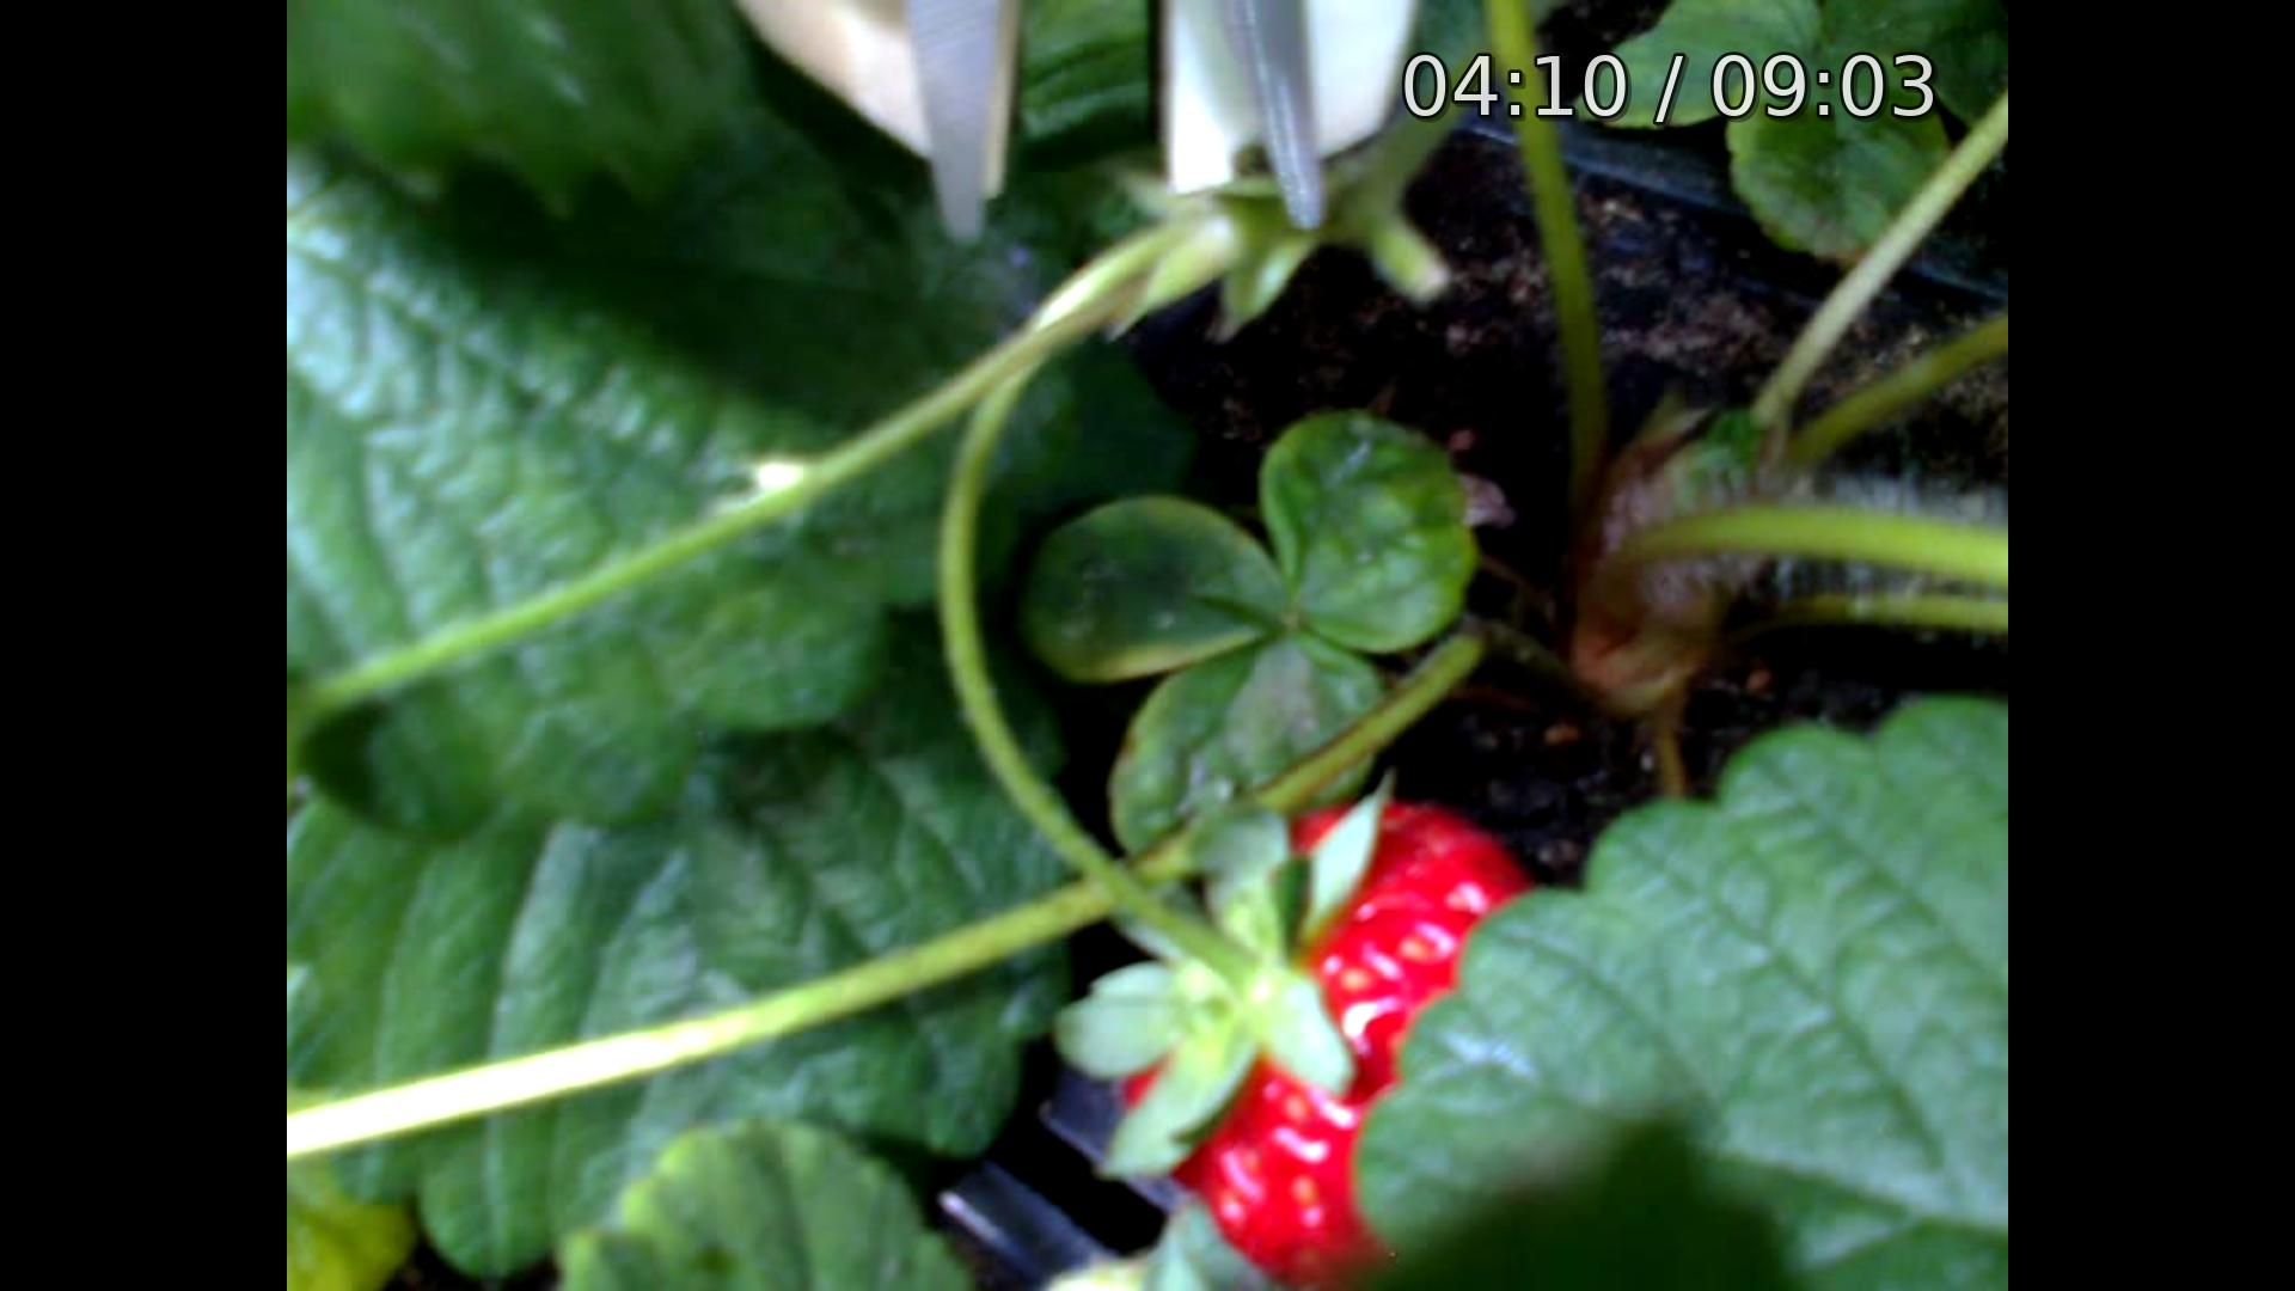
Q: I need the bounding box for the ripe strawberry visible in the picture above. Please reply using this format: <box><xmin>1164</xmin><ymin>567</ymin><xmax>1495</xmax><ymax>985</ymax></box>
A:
<box><xmin>1164</xmin><ymin>770</ymin><xmax>1523</xmax><ymax>1287</ymax></box>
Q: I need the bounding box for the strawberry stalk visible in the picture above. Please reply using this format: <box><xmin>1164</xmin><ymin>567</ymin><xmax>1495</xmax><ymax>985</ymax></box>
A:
<box><xmin>938</xmin><ymin>472</ymin><xmax>1260</xmax><ymax>1087</ymax></box>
